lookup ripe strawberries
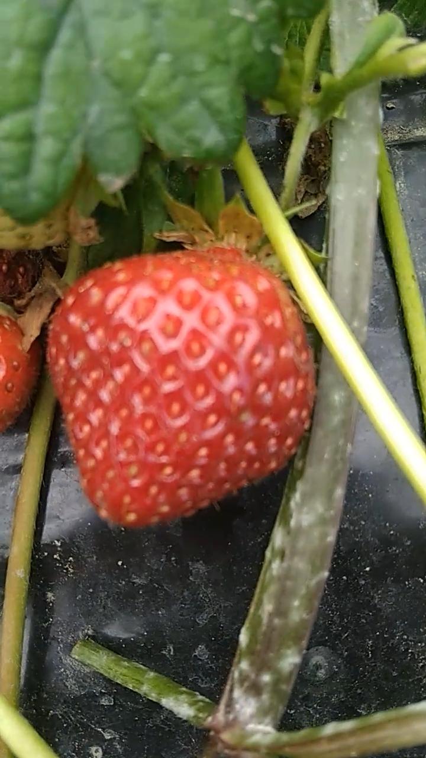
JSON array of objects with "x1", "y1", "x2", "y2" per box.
[
  {"x1": 43, "y1": 248, "x2": 324, "y2": 533},
  {"x1": 0, "y1": 297, "x2": 47, "y2": 467}
]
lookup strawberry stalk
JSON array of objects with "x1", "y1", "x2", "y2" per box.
[{"x1": 185, "y1": 115, "x2": 334, "y2": 259}]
